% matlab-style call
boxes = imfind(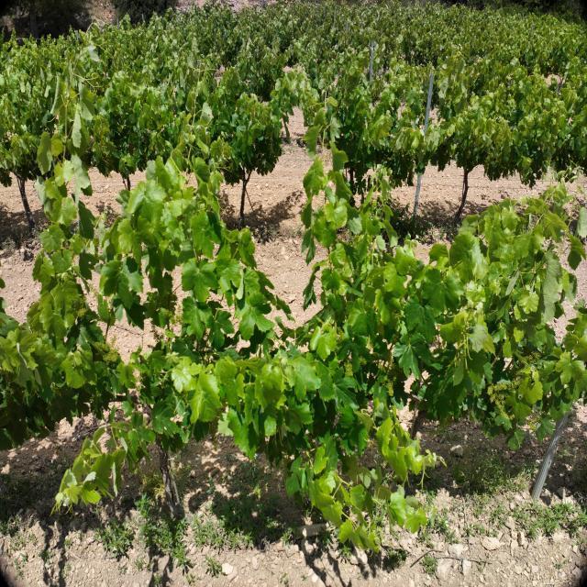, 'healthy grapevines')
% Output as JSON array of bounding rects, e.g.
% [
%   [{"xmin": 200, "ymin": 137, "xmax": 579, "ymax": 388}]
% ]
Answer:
[
  {"xmin": 0, "ymin": 148, "xmax": 279, "ymax": 532},
  {"xmin": 265, "ymin": 156, "xmax": 587, "ymax": 576}
]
